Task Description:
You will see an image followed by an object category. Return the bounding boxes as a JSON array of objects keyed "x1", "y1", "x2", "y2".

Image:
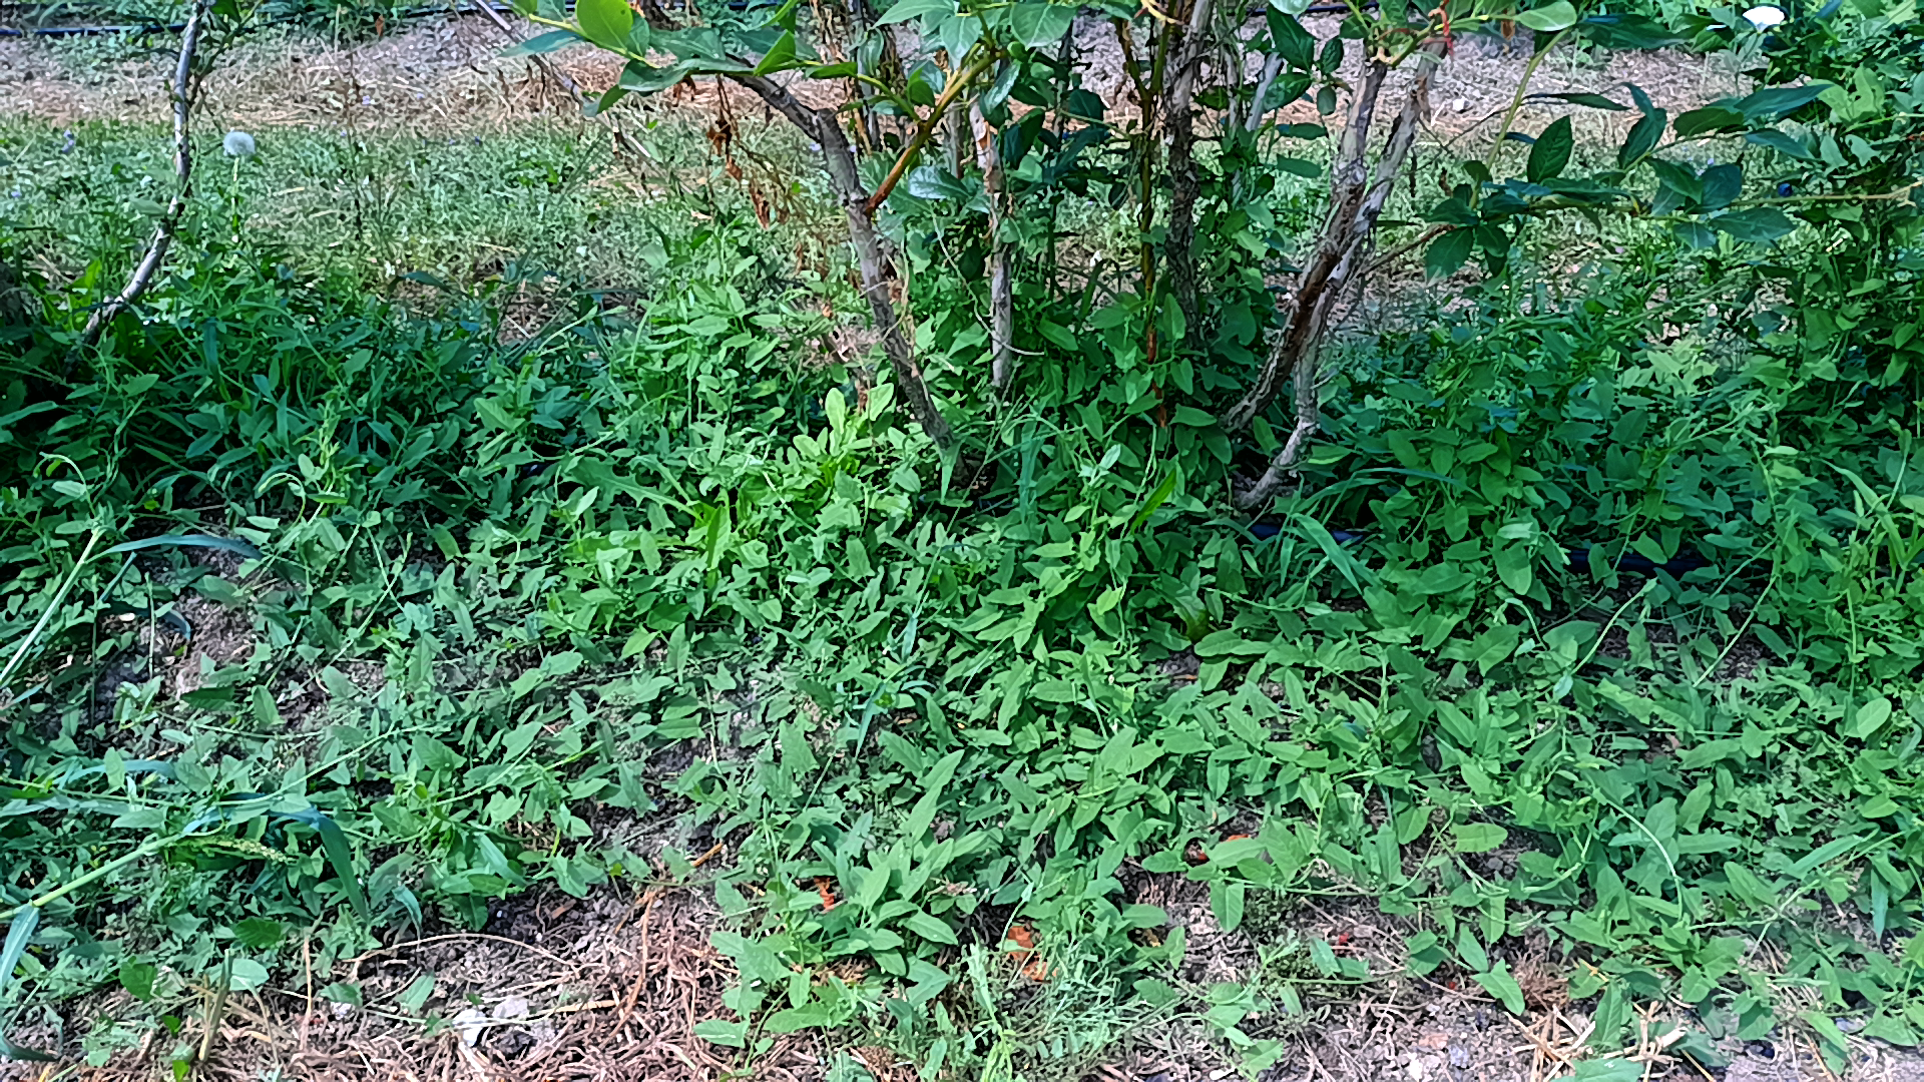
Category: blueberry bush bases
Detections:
[
  {"x1": 1, "y1": 165, "x2": 252, "y2": 540},
  {"x1": 811, "y1": 195, "x2": 1419, "y2": 625}
]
